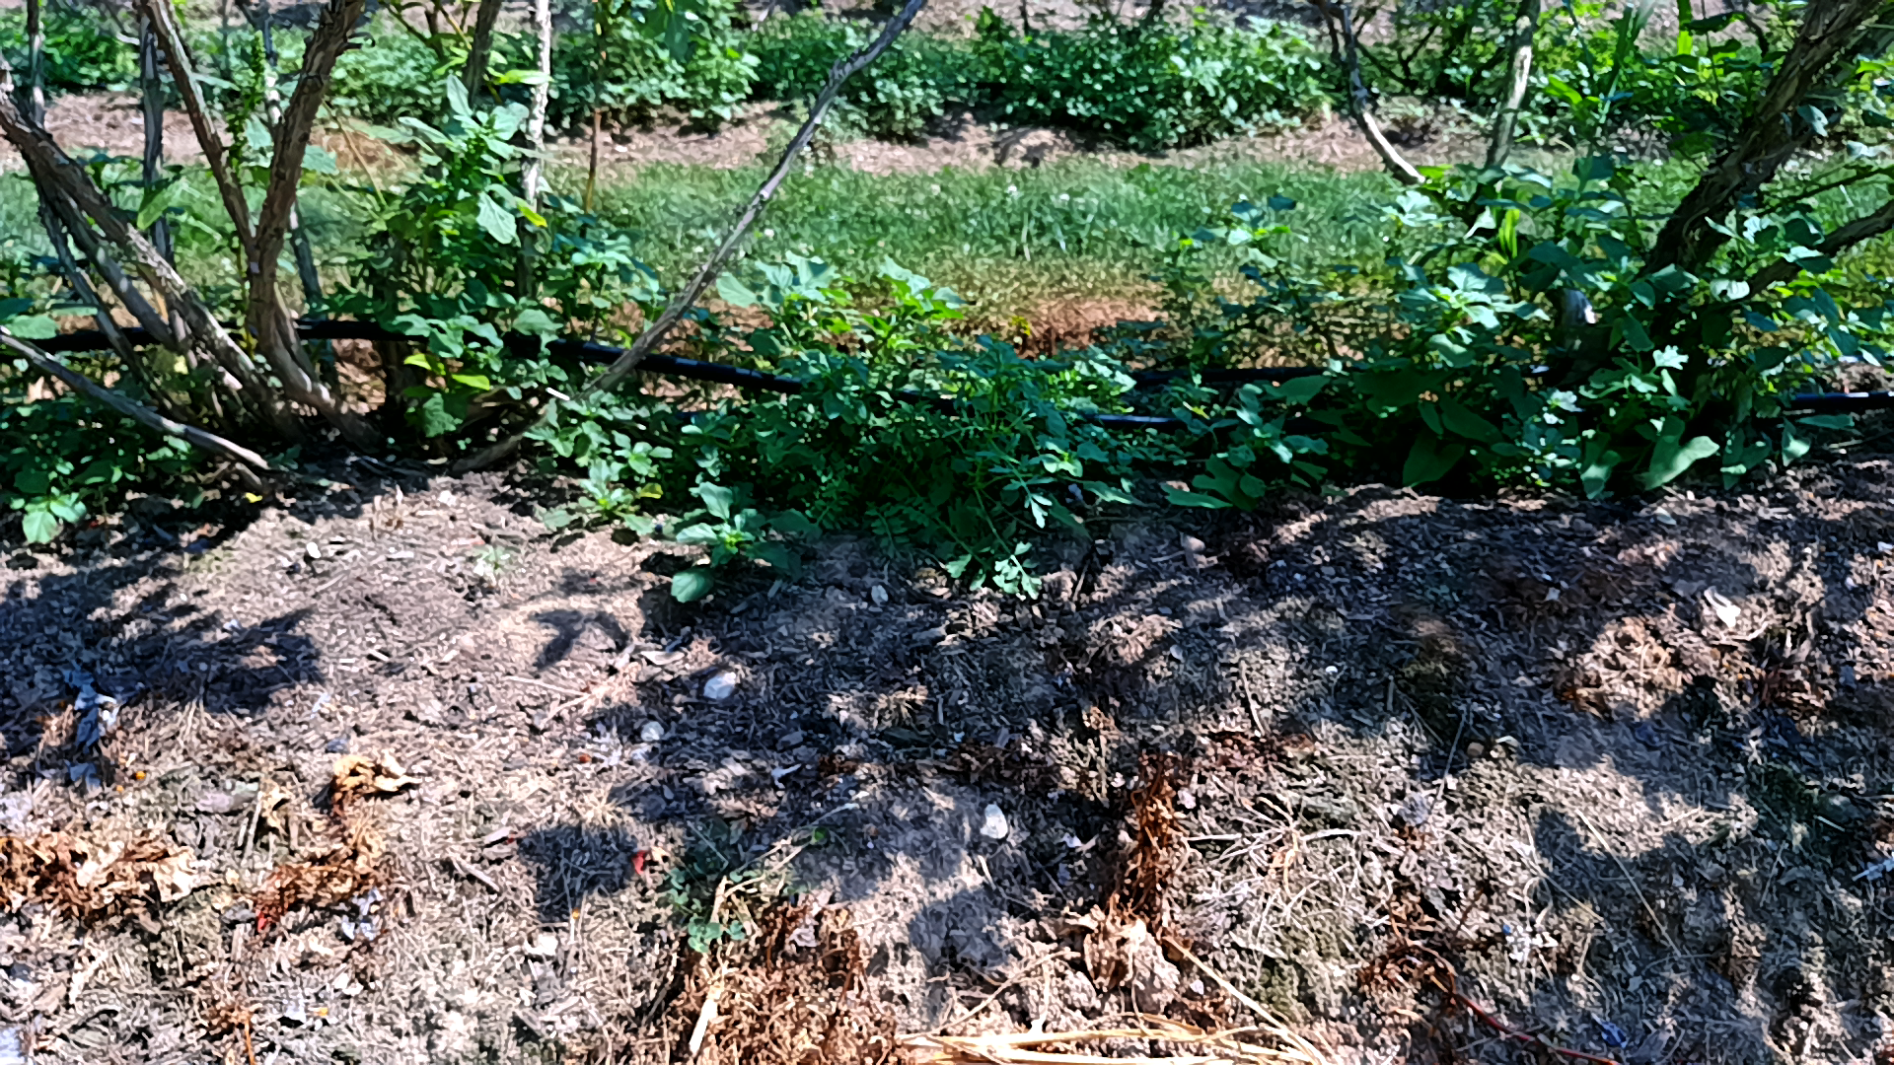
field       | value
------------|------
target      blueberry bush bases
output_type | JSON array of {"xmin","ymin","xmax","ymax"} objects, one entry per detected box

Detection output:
[
  {"xmin": 1355, "ymin": 155, "xmax": 1833, "ymax": 538},
  {"xmin": 138, "ymin": 170, "xmax": 612, "ymax": 525}
]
